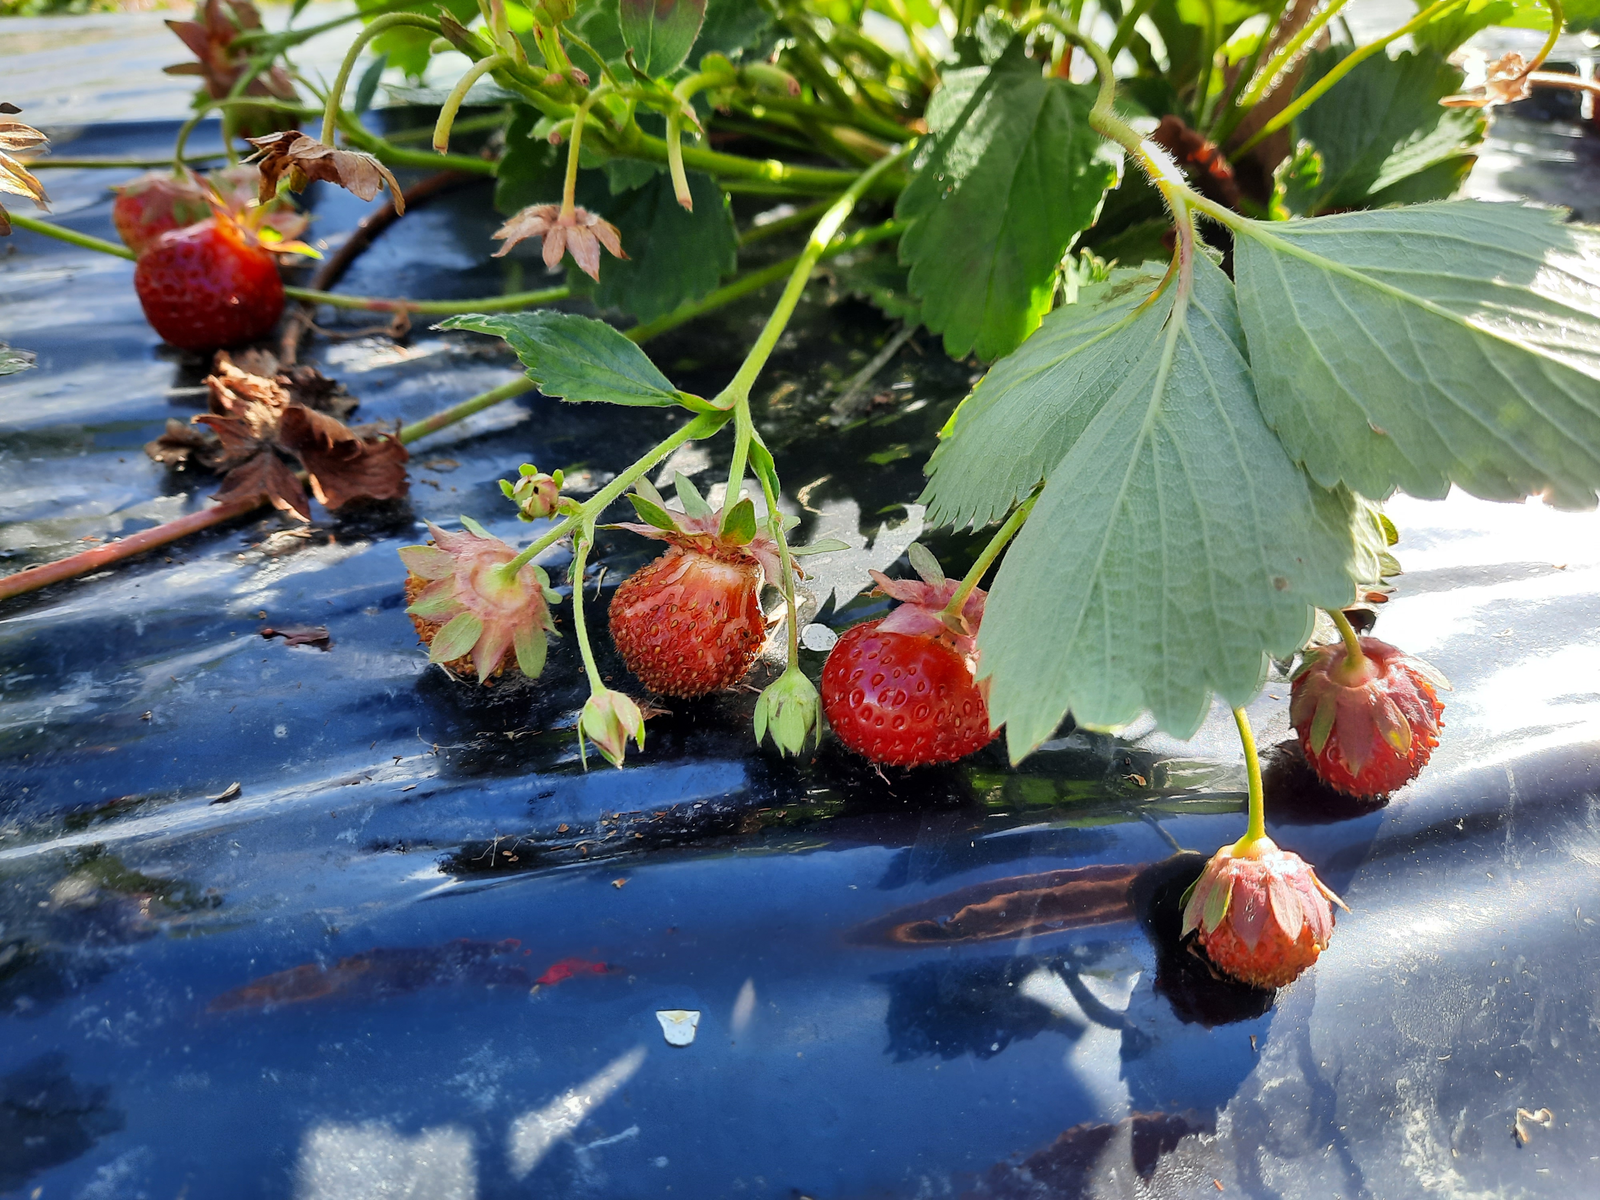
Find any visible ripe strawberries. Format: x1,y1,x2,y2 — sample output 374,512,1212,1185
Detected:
132,180,228,237
844,604,995,743
137,218,278,343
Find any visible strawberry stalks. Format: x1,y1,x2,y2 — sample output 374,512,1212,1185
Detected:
686,429,750,584
1312,582,1381,699
165,94,217,183
924,495,1031,647
482,514,577,594
1220,675,1275,873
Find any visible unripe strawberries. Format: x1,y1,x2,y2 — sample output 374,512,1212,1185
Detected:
1304,656,1432,772
384,543,533,671
585,573,796,714
1192,848,1372,989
